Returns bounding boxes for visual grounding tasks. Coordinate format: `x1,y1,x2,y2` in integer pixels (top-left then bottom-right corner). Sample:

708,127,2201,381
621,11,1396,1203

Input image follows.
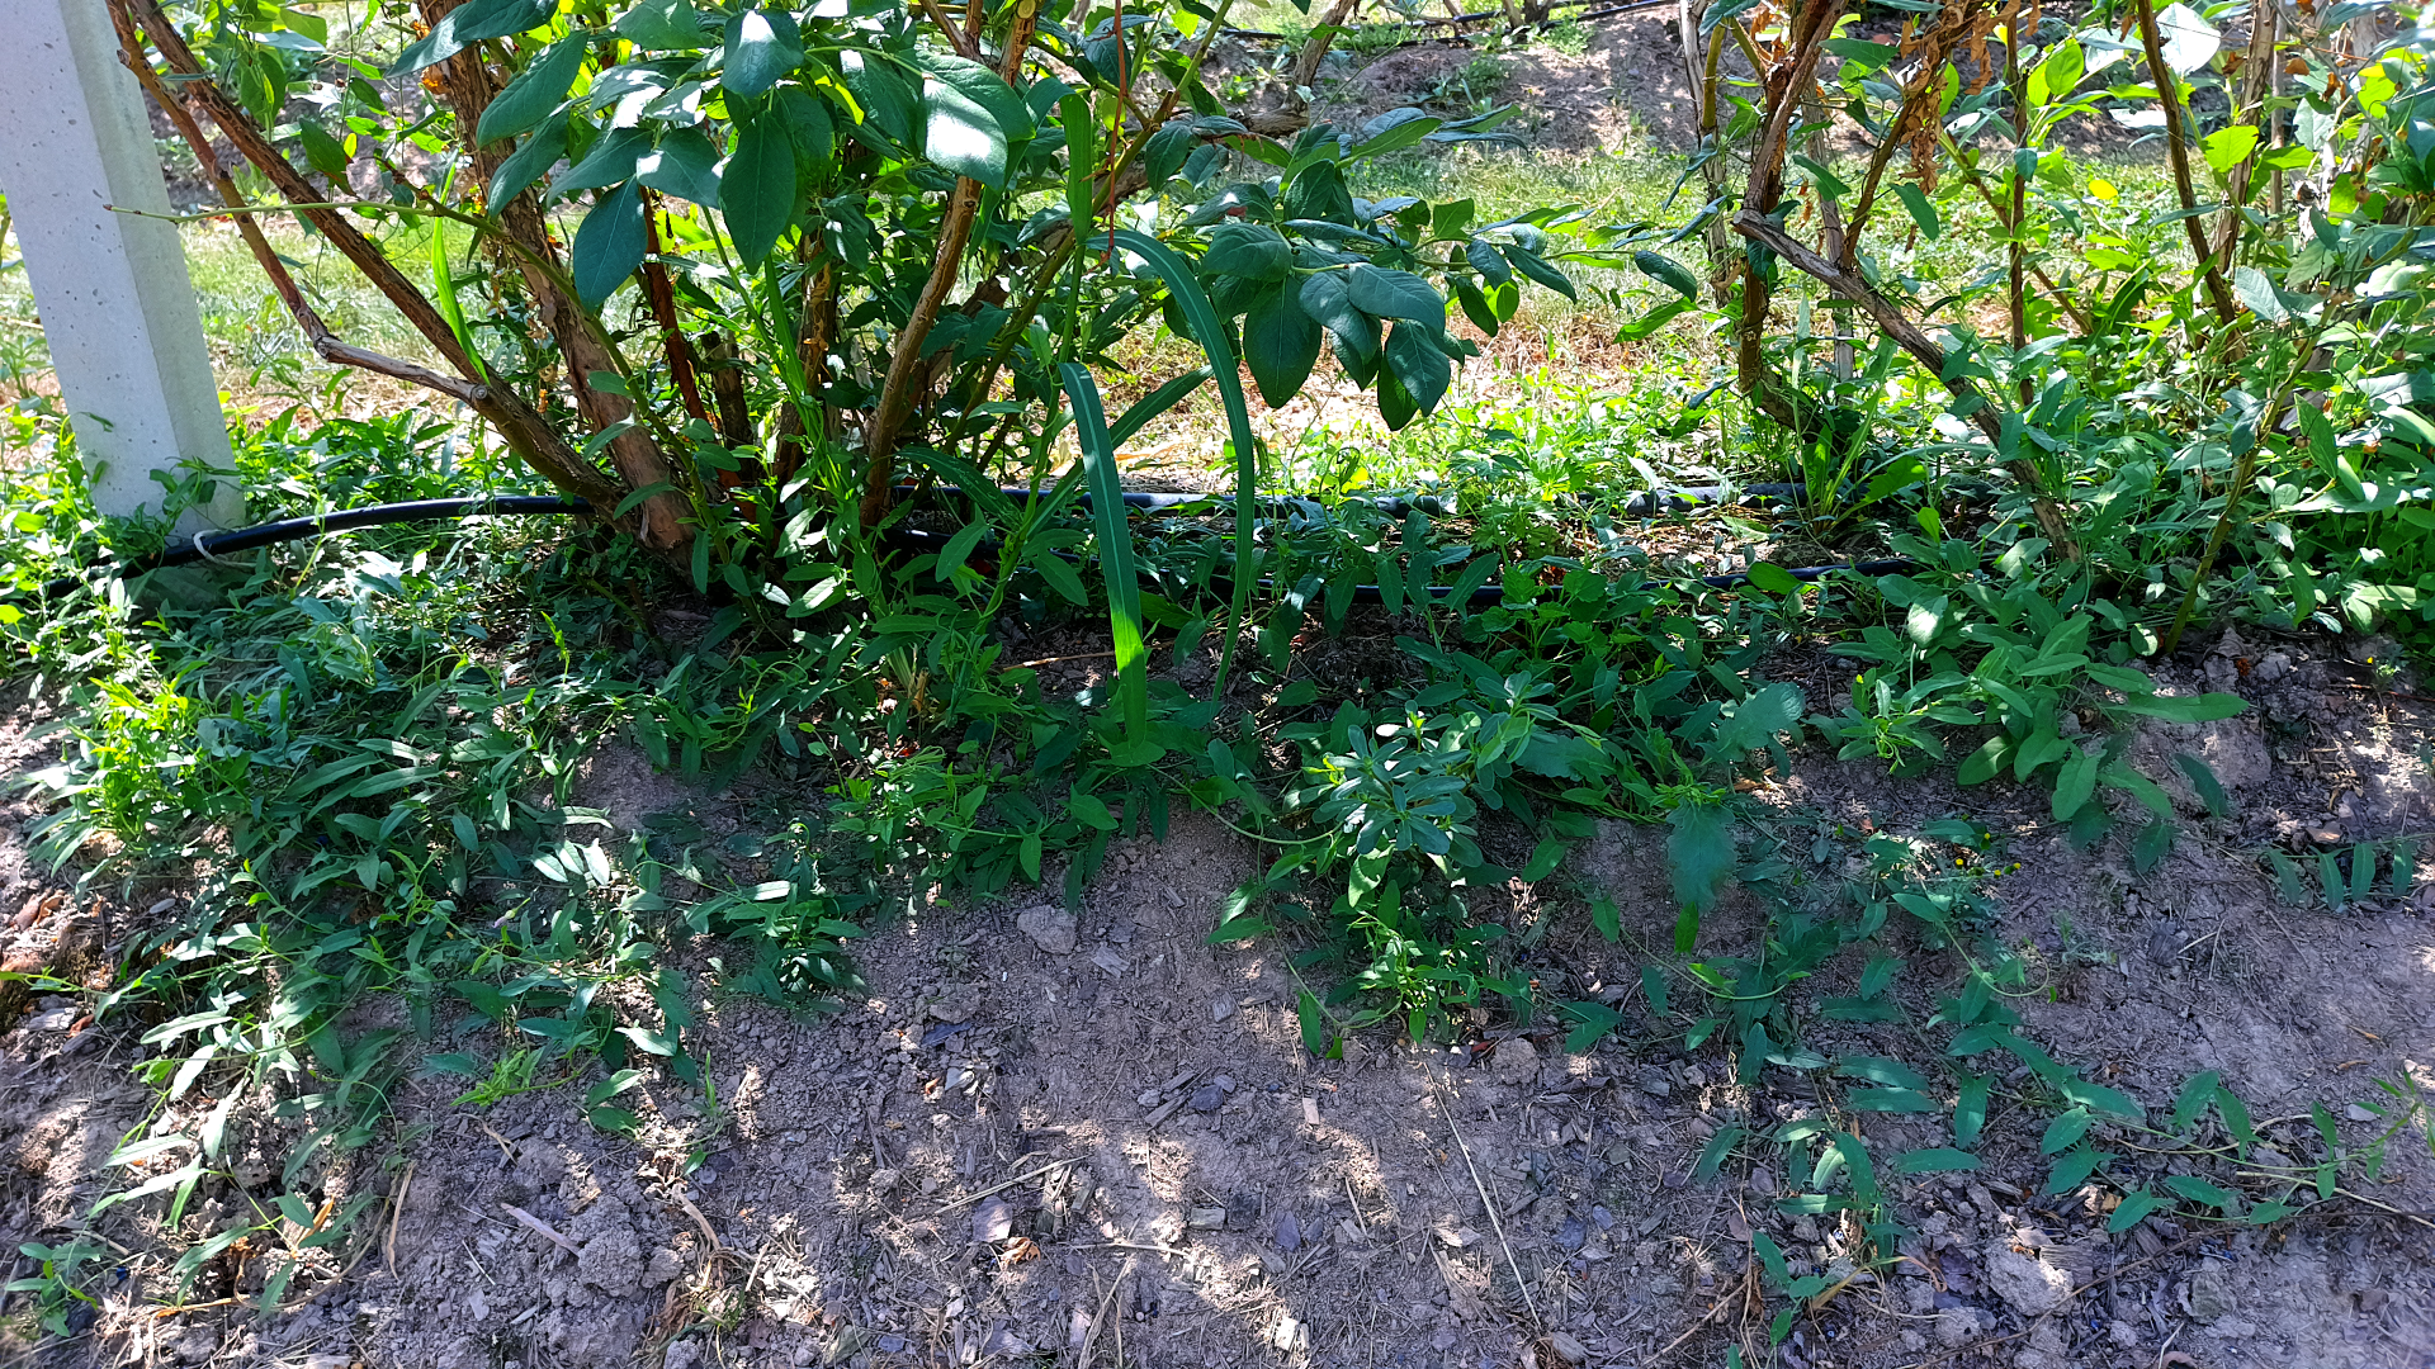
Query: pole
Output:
3,15,236,558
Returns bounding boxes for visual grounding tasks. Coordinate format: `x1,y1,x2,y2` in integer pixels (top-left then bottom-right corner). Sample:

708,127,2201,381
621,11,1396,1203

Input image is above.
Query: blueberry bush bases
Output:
425,284,1089,726
1782,266,2403,739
